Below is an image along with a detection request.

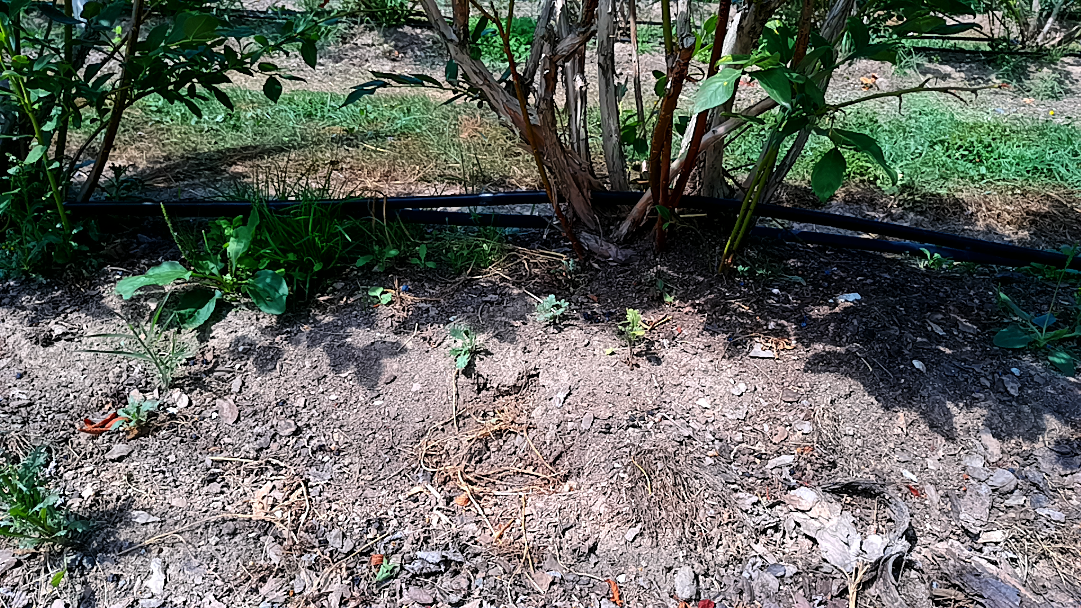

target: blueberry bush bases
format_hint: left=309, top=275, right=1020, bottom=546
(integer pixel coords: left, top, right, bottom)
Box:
left=486, top=55, right=834, bottom=304
left=988, top=4, right=1080, bottom=68
left=0, top=91, right=132, bottom=283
